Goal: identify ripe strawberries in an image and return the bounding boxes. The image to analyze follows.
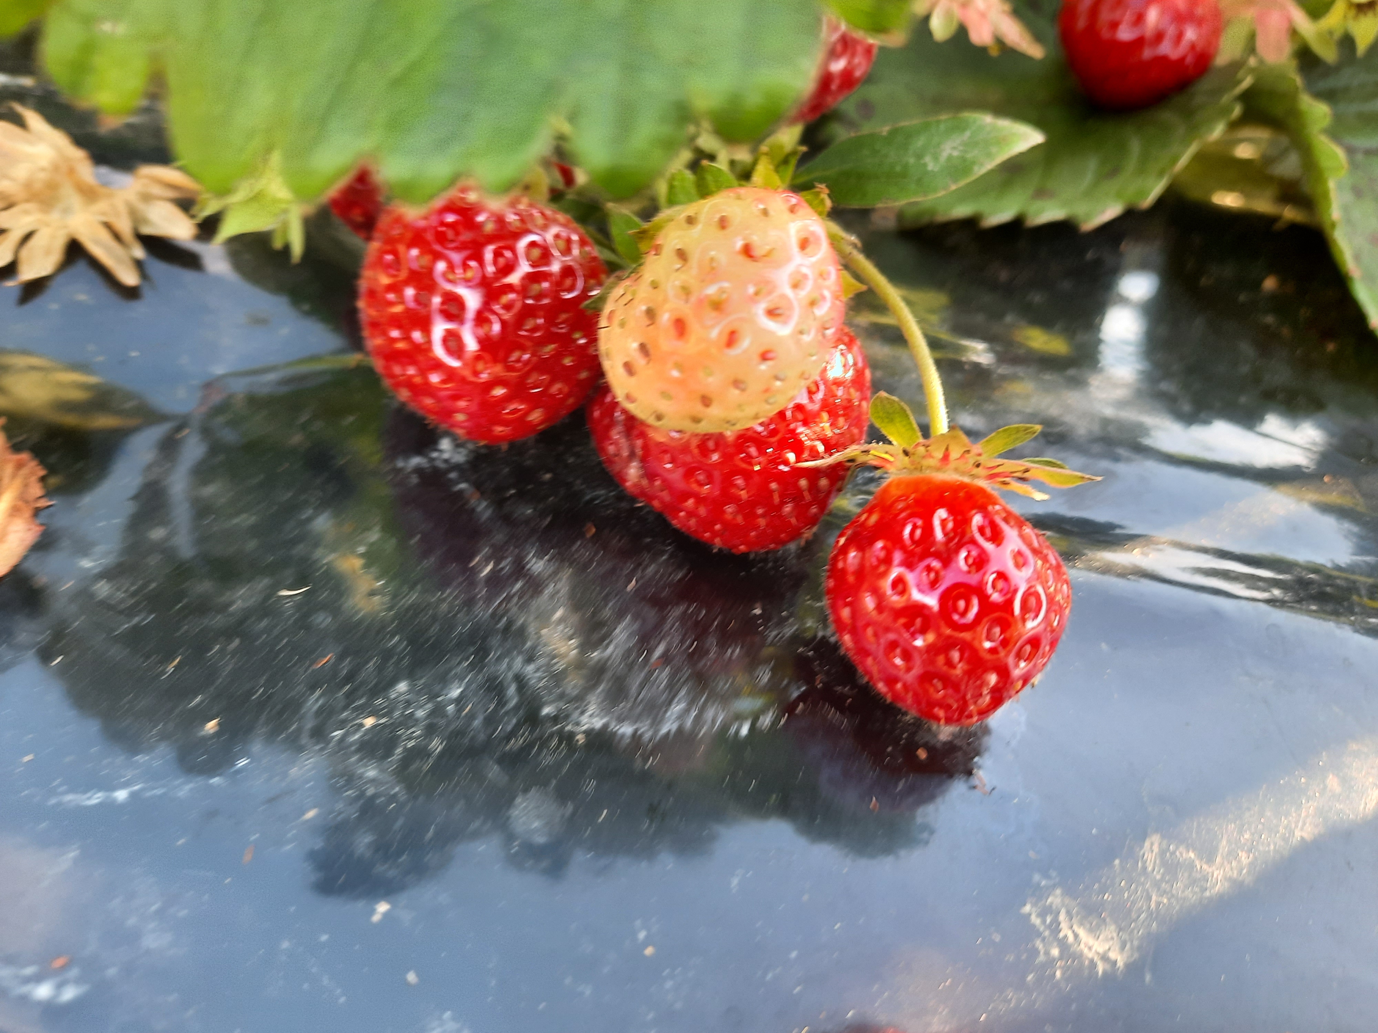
[1046,0,1234,99]
[356,203,599,435]
[618,307,876,537]
[834,458,1052,716]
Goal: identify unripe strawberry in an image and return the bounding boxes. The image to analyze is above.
[613,190,819,423]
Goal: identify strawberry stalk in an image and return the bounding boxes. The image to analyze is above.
[852,247,958,530]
